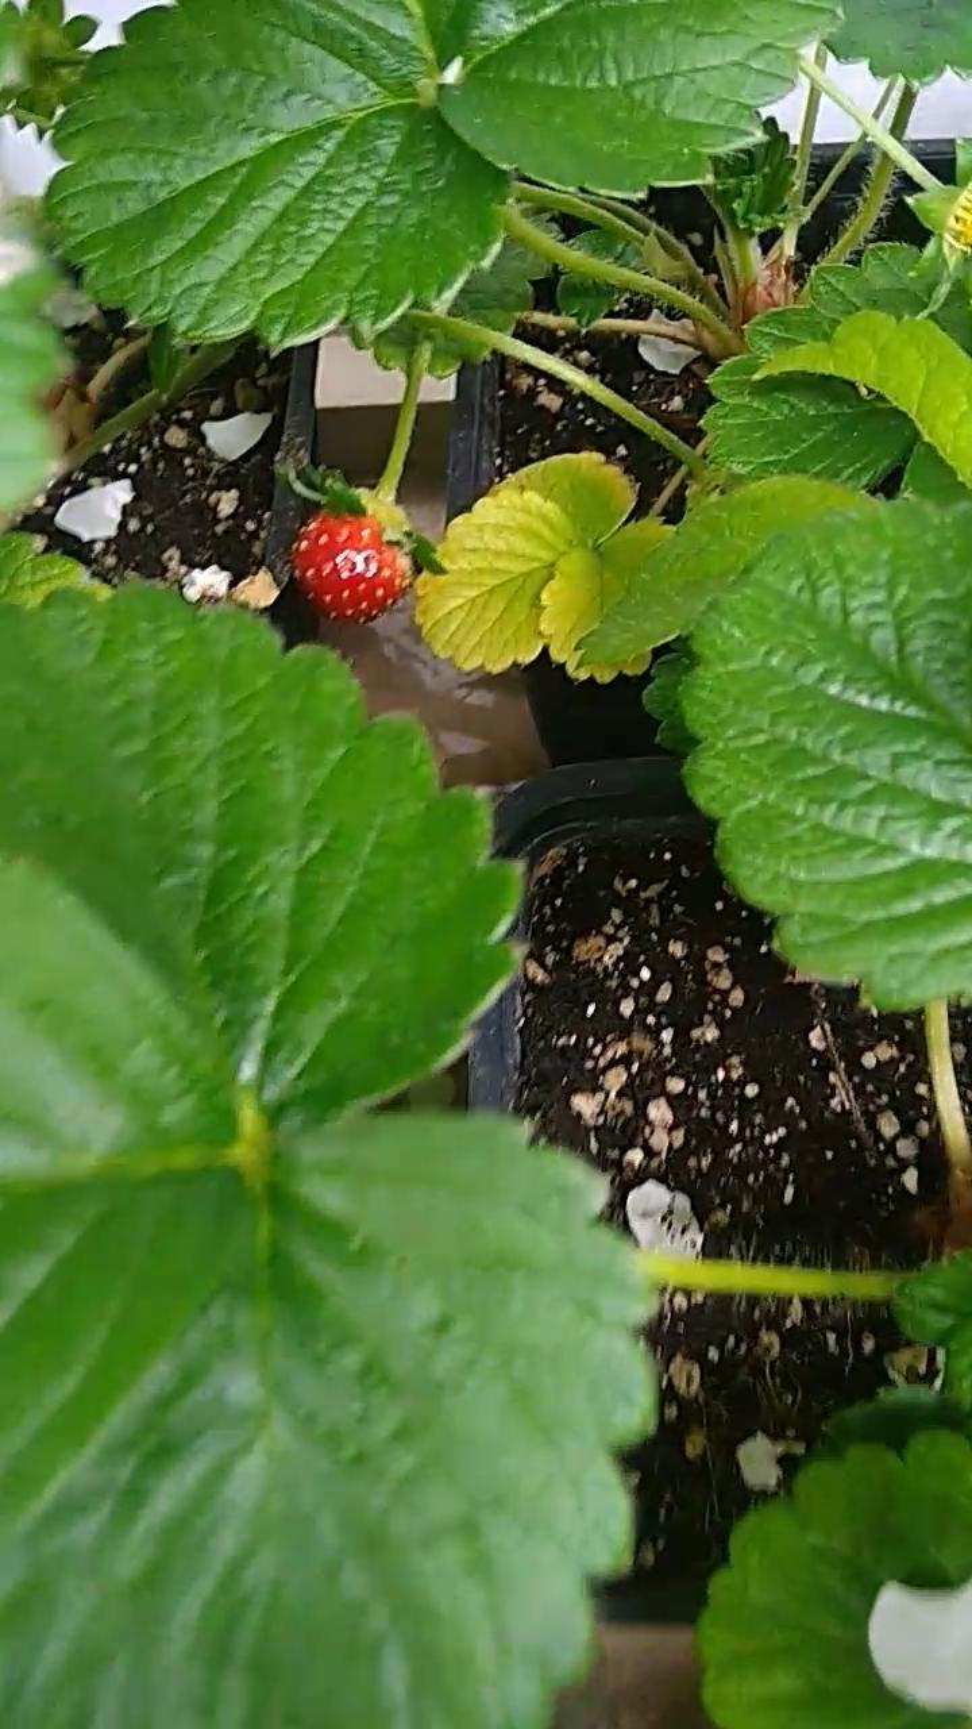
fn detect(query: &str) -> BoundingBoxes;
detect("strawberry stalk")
[337,355,429,542]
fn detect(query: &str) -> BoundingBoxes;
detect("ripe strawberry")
[270,506,429,626]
